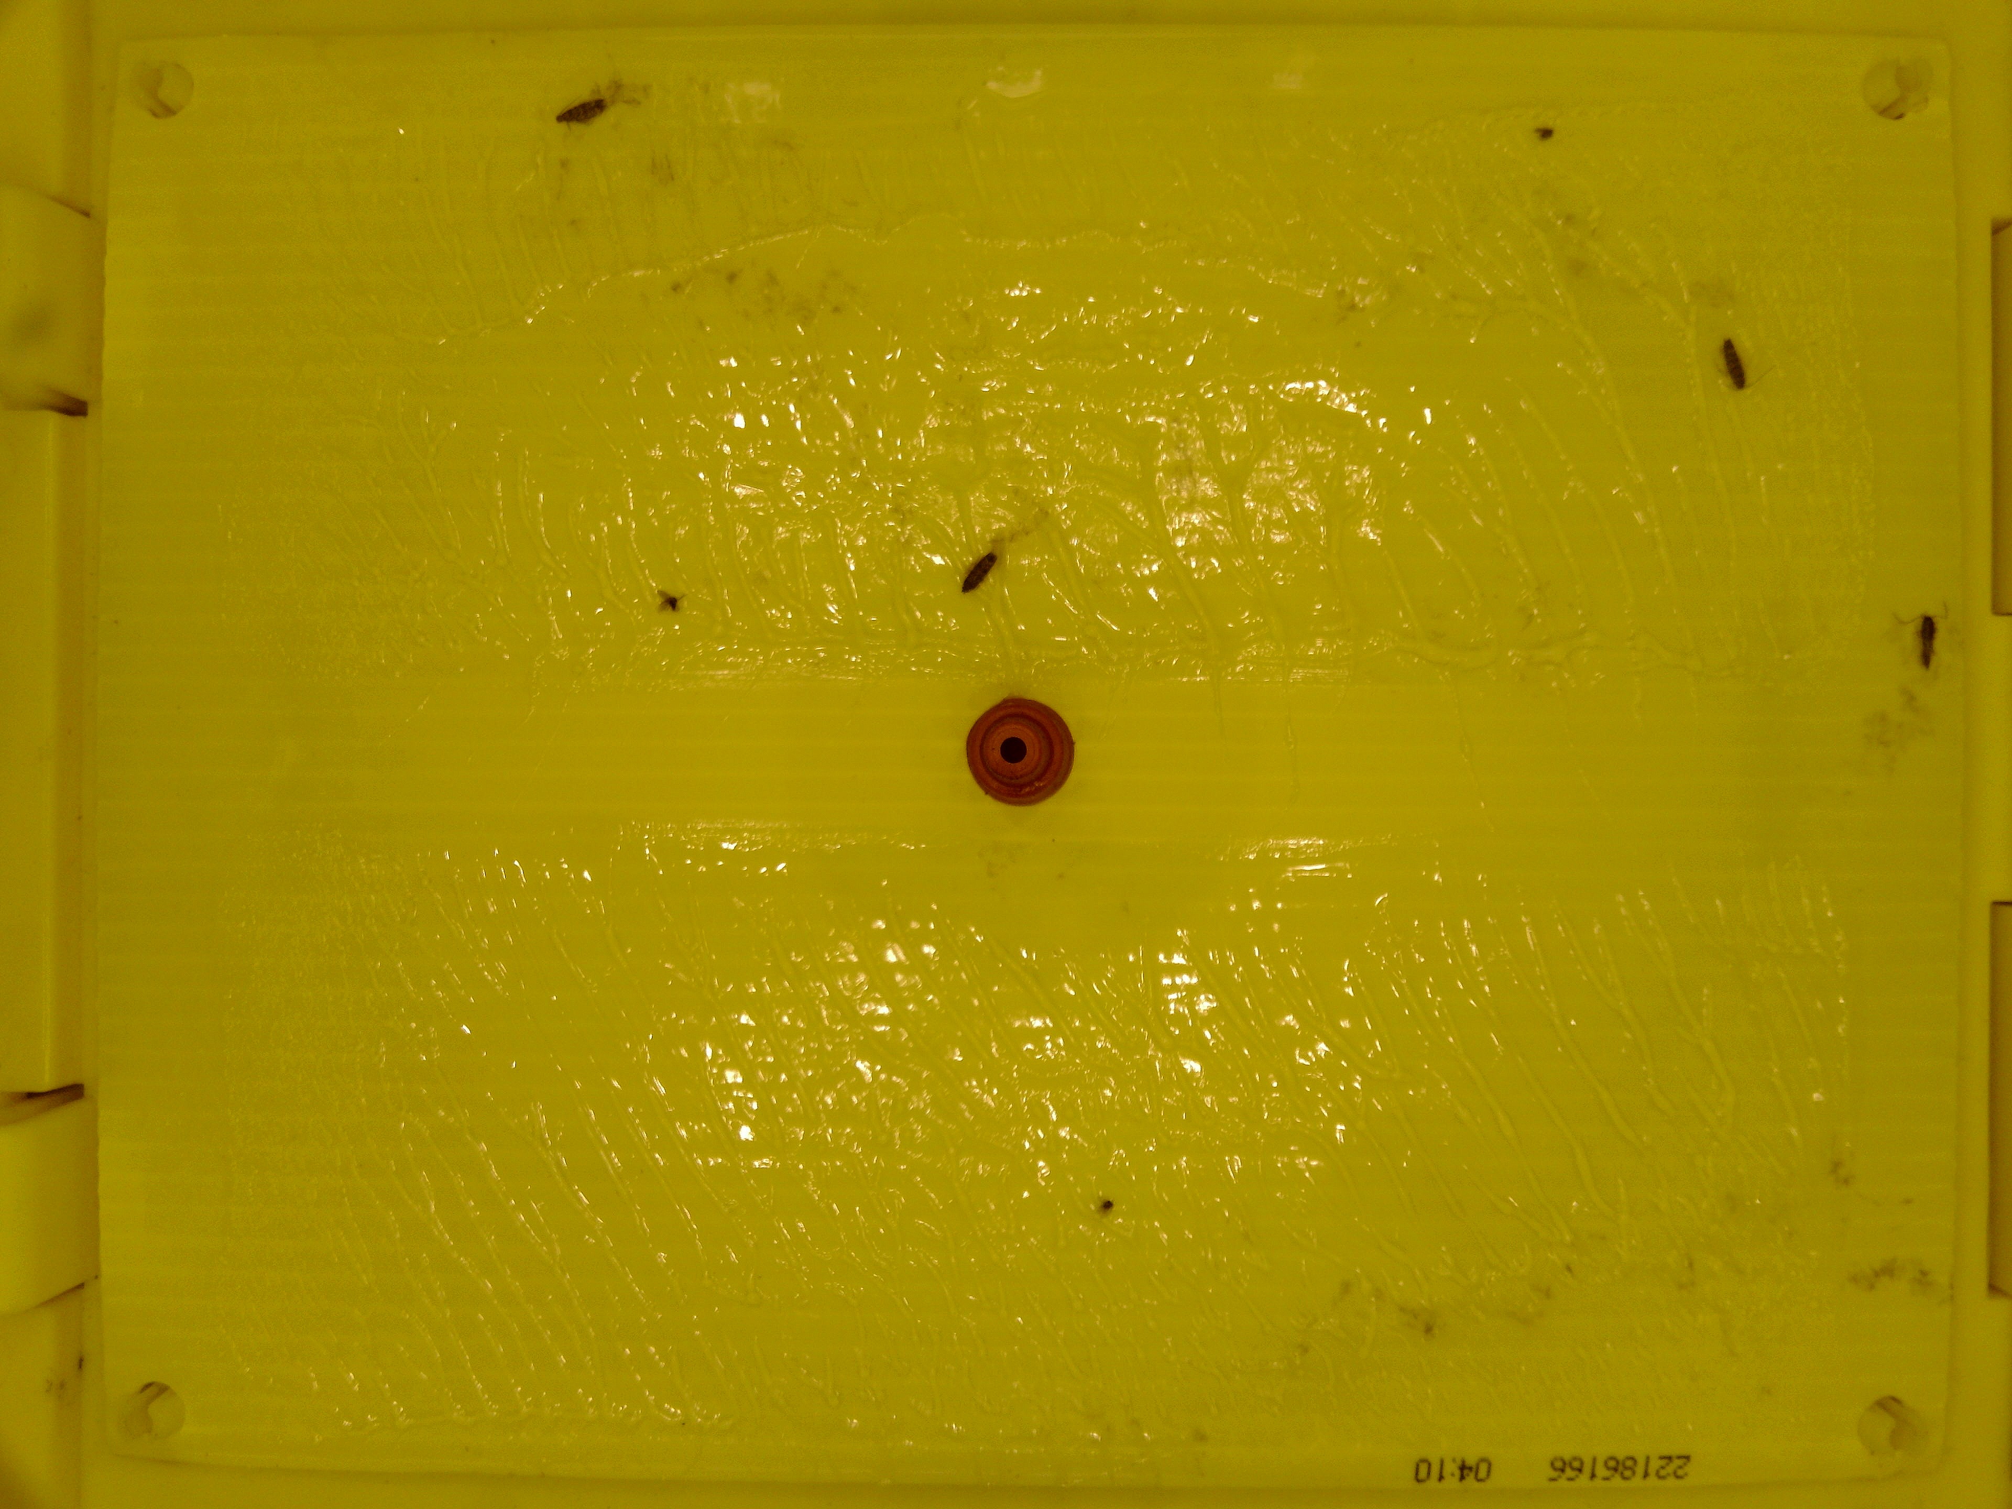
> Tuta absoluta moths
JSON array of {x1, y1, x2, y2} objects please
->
[
  {"x1": 1912, "y1": 610, "x2": 1942, "y2": 669},
  {"x1": 958, "y1": 549, "x2": 997, "y2": 593},
  {"x1": 1719, "y1": 335, "x2": 1746, "y2": 389},
  {"x1": 554, "y1": 93, "x2": 608, "y2": 125}
]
